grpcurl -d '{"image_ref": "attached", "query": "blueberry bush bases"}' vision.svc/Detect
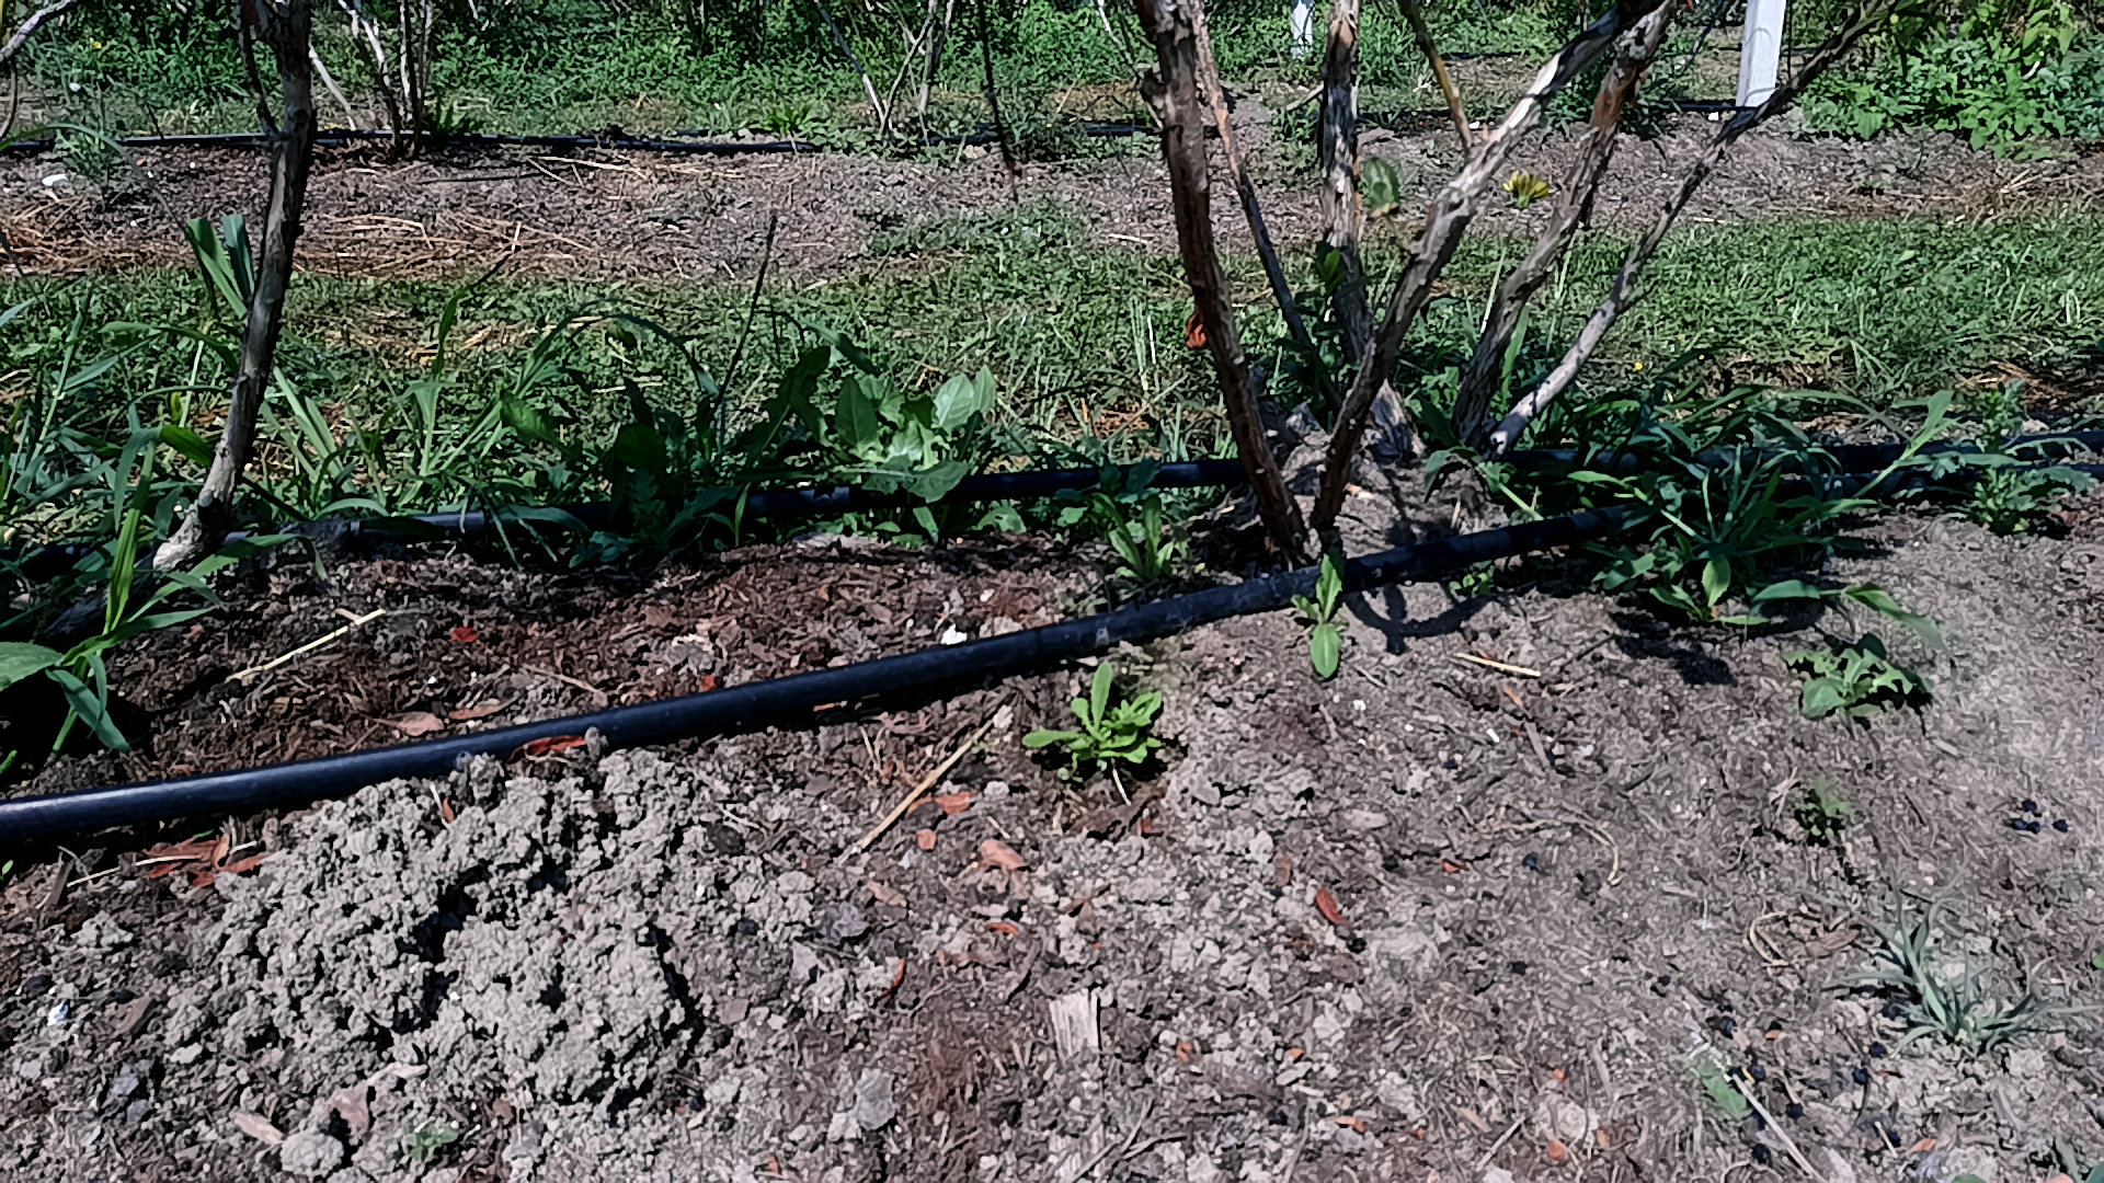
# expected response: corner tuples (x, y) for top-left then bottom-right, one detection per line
(826, 57), (967, 165)
(0, 388), (302, 819)
(317, 43), (488, 171)
(1179, 285), (1646, 678)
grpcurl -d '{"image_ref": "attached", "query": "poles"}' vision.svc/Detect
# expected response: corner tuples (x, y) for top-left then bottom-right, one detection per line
(1738, 3), (1788, 104)
(1284, 0), (1316, 53)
